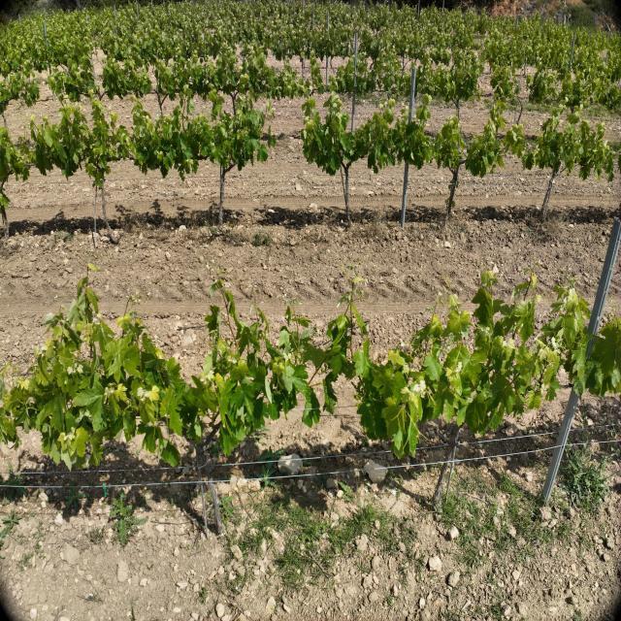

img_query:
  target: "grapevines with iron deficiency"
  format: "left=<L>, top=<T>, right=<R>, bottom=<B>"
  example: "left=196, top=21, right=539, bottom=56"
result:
left=367, top=263, right=621, bottom=515
left=0, top=277, right=356, bottom=555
